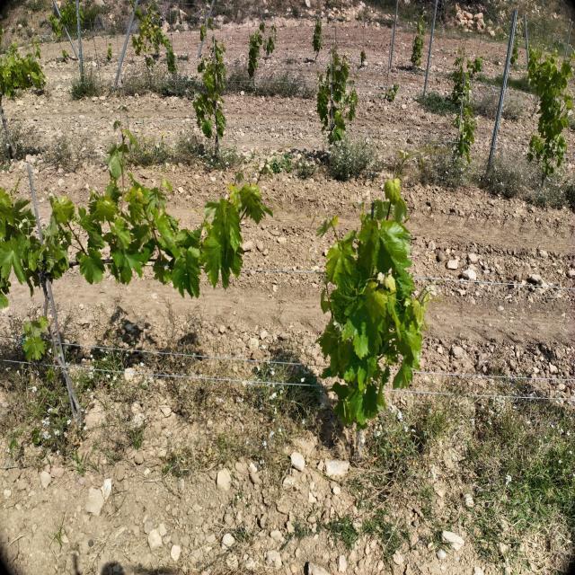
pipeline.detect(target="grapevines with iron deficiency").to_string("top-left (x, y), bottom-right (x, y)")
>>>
top-left (0, 116), bottom-right (278, 425)
top-left (313, 165), bottom-right (434, 460)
